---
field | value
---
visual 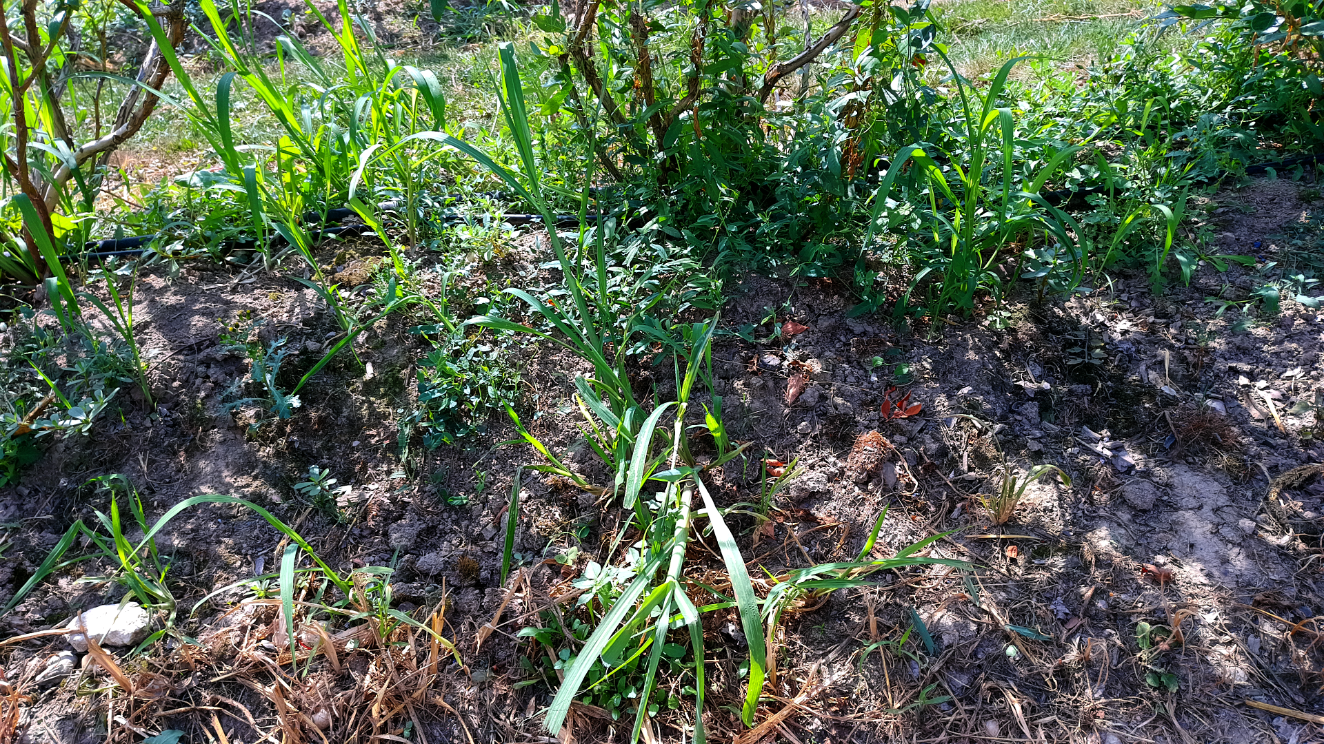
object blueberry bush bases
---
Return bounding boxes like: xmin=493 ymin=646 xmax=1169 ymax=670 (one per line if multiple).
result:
xmin=3 ymin=113 xmax=155 ymax=340
xmin=561 ymin=93 xmax=947 ymax=303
